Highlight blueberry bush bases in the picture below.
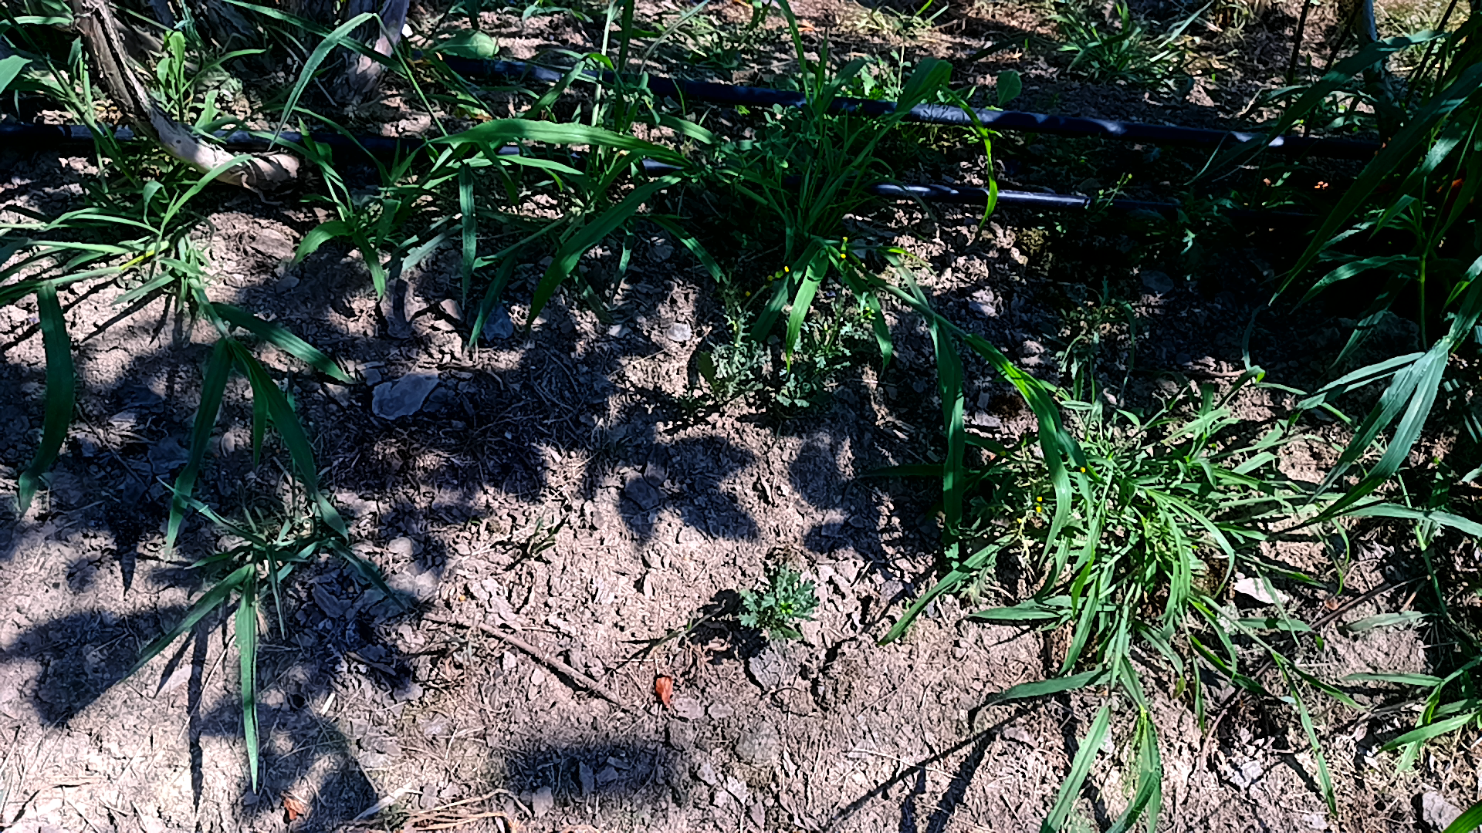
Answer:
[68,1,458,263]
[1339,1,1481,319]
